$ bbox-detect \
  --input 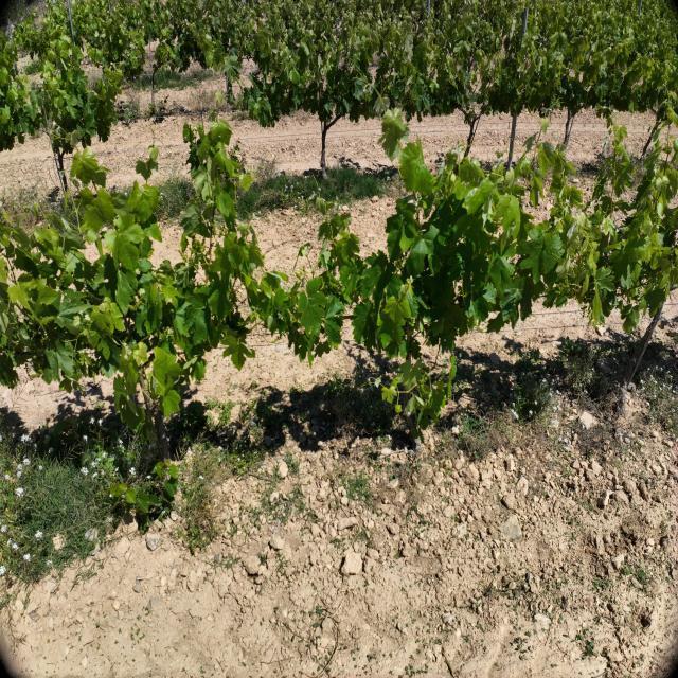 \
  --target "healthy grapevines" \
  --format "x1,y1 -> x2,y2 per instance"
273,128 -> 557,452
7,111 -> 262,496
555,133 -> 677,399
